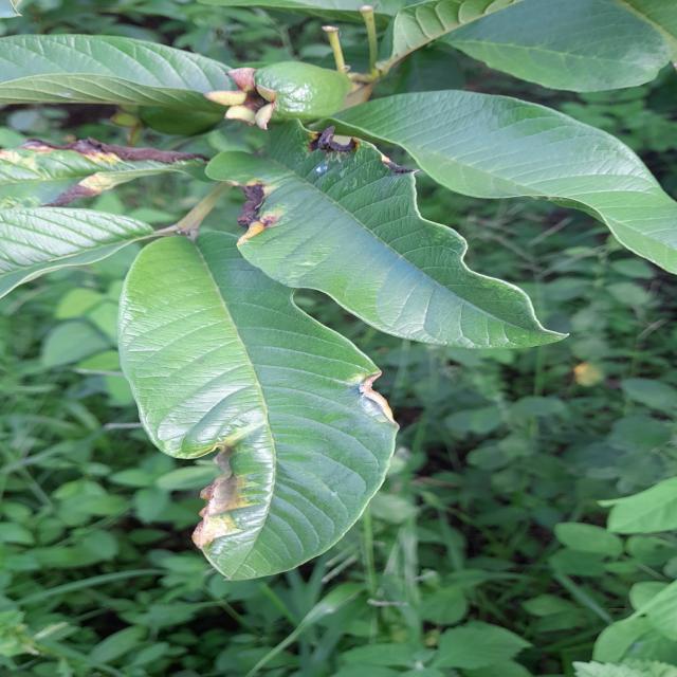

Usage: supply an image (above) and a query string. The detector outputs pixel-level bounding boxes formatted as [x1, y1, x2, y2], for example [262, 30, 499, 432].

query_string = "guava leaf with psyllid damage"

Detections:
[112, 234, 431, 591]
